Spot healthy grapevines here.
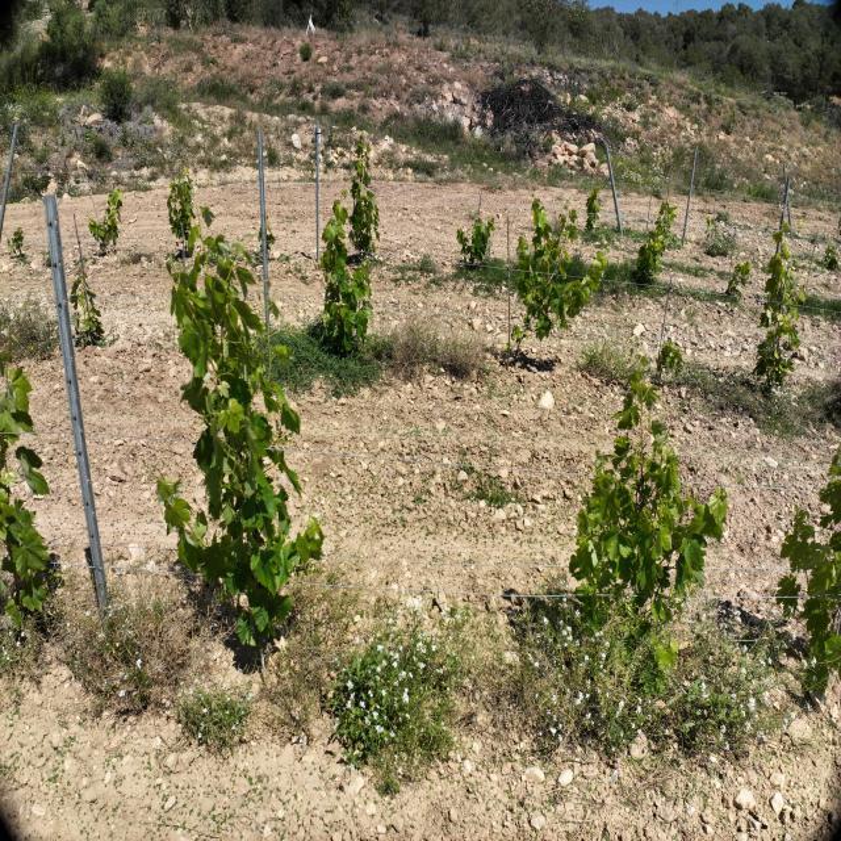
[140,221,341,694]
[564,364,726,706]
